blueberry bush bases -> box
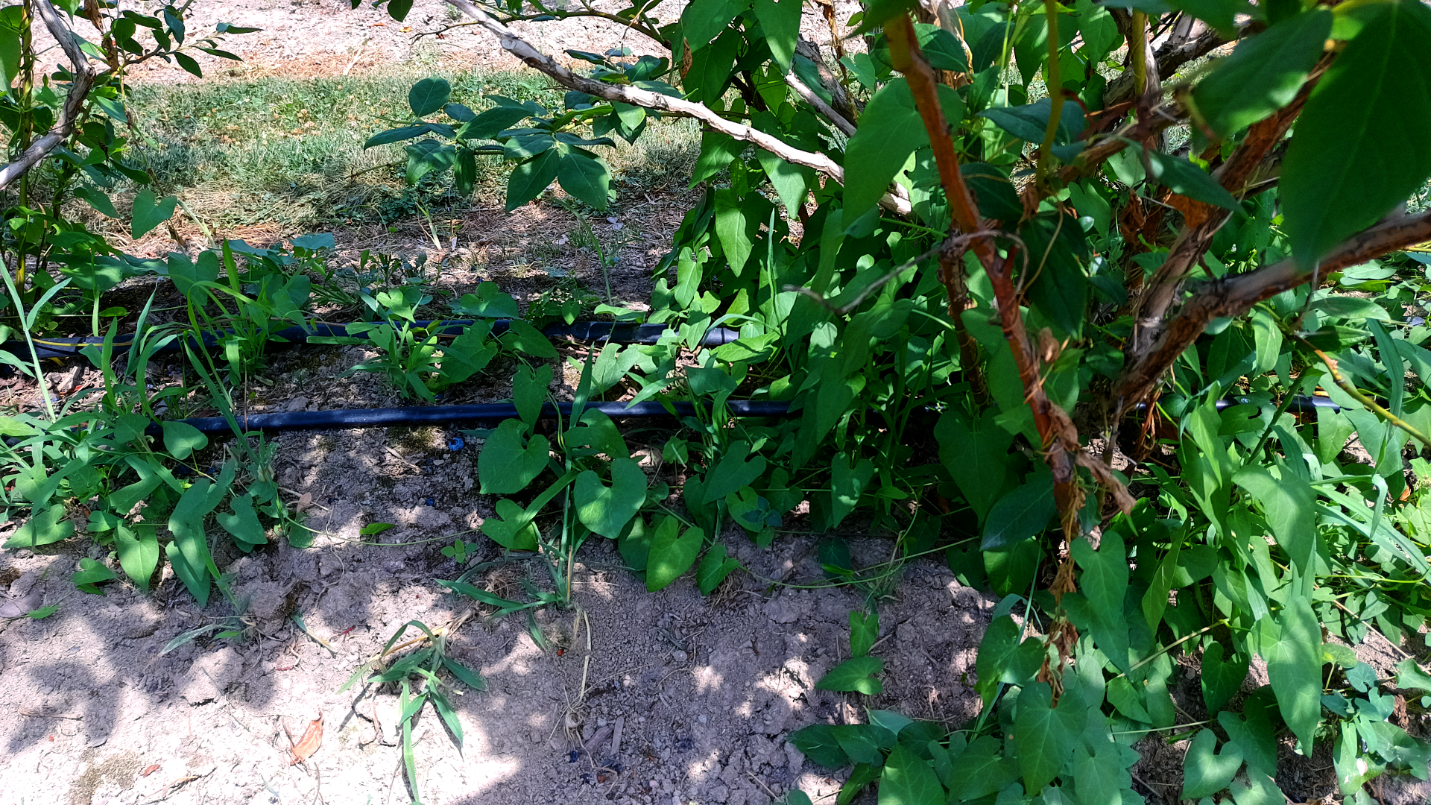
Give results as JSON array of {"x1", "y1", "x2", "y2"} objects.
[
  {"x1": 694, "y1": 65, "x2": 1397, "y2": 640},
  {"x1": 0, "y1": 135, "x2": 134, "y2": 435}
]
